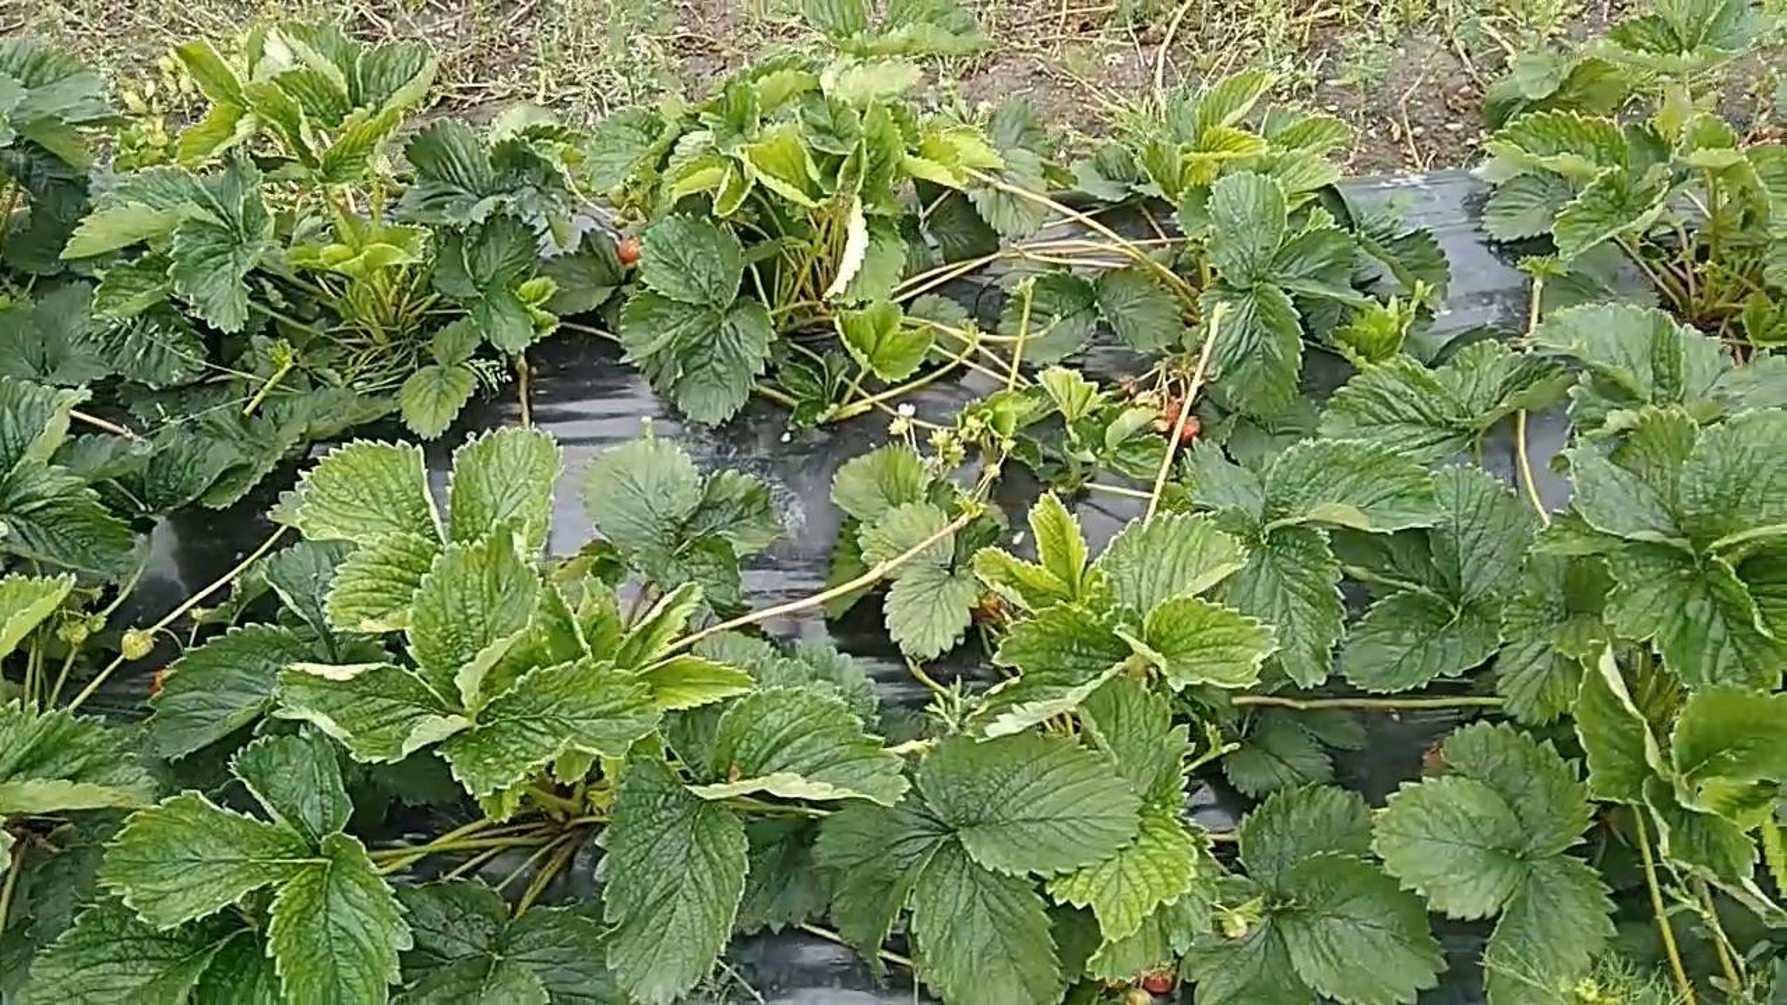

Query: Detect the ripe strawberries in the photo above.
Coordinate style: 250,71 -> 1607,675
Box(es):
1145,946 -> 1180,1001
611,232 -> 655,267
1178,415 -> 1208,442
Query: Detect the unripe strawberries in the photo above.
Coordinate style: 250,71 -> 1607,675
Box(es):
88,616 -> 110,634
68,625 -> 90,644
1222,914 -> 1247,939
122,624 -> 154,666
